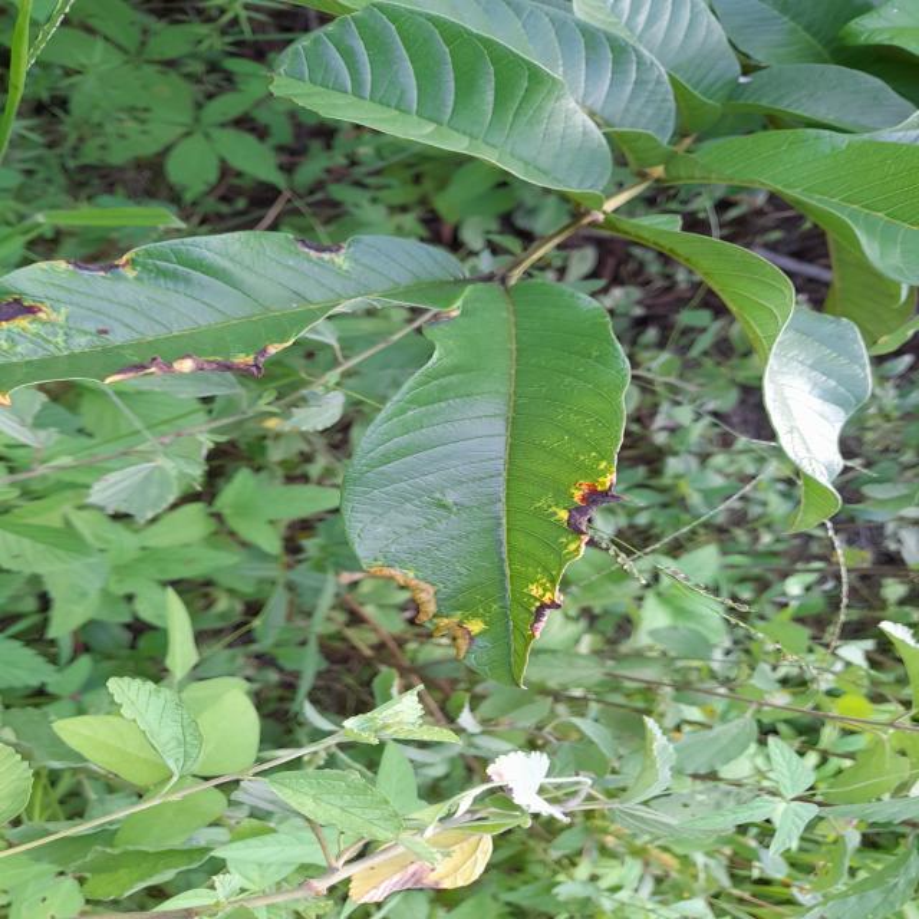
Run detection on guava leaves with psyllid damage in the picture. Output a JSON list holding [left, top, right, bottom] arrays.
[[6, 197, 576, 437], [330, 276, 647, 713]]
